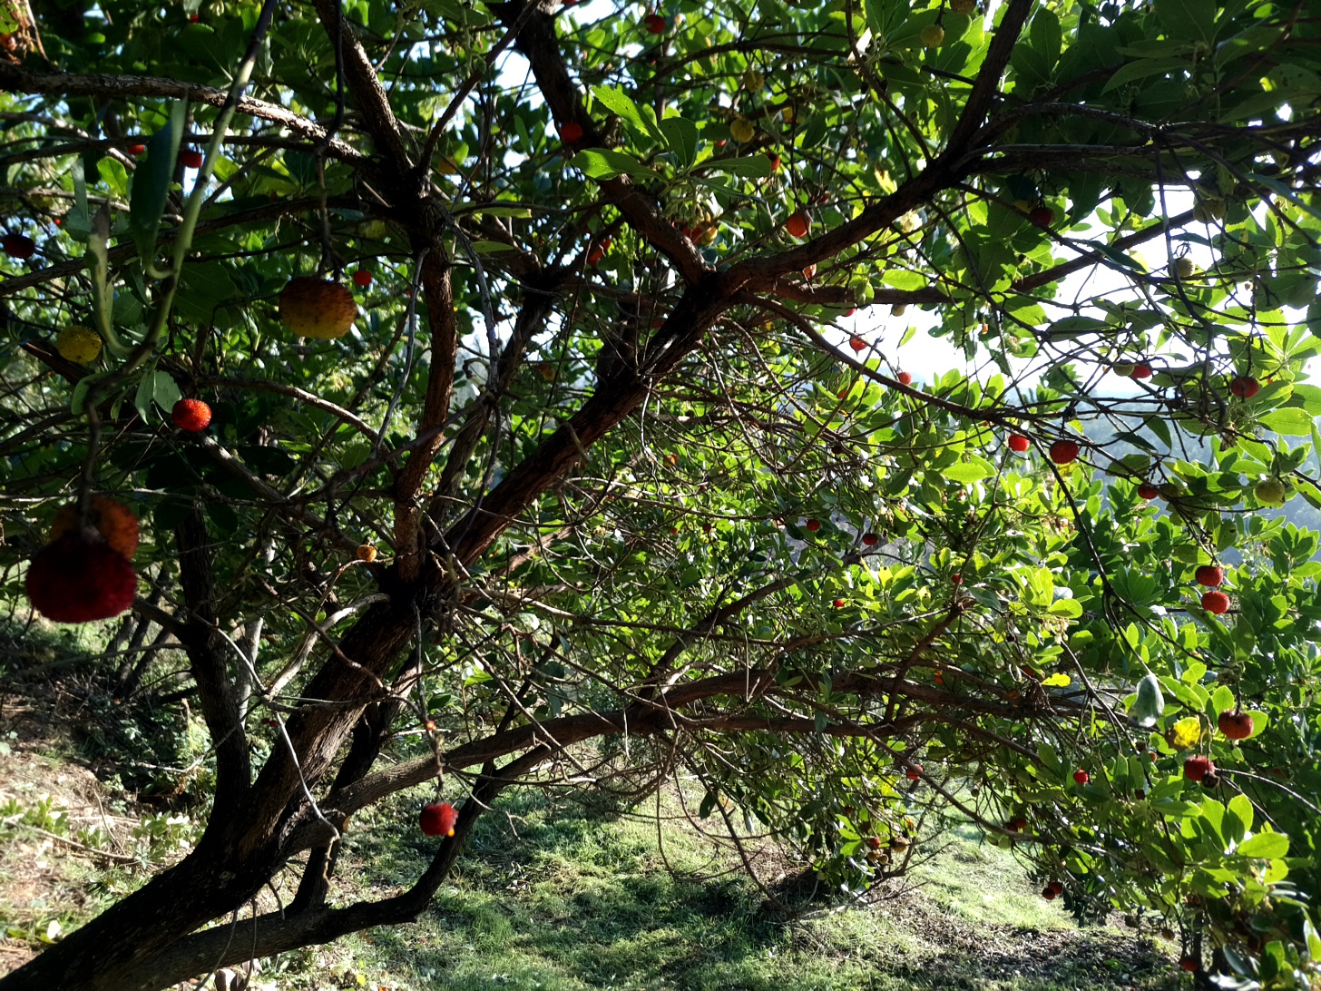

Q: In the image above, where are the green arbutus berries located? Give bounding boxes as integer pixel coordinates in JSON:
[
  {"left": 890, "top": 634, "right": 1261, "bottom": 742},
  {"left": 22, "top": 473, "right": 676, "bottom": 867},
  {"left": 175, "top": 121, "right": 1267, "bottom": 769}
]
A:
[
  {"left": 1192, "top": 195, "right": 1229, "bottom": 224},
  {"left": 1159, "top": 481, "right": 1178, "bottom": 502},
  {"left": 1113, "top": 358, "right": 1134, "bottom": 377},
  {"left": 1257, "top": 479, "right": 1287, "bottom": 502},
  {"left": 744, "top": 71, "right": 767, "bottom": 93},
  {"left": 730, "top": 119, "right": 756, "bottom": 142},
  {"left": 1167, "top": 257, "right": 1195, "bottom": 277},
  {"left": 919, "top": 22, "right": 946, "bottom": 48}
]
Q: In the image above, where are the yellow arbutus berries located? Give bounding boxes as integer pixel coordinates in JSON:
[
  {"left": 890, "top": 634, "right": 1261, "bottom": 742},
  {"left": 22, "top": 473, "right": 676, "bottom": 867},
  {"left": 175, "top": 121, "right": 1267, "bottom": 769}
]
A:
[
  {"left": 1146, "top": 751, "right": 1157, "bottom": 762},
  {"left": 700, "top": 233, "right": 714, "bottom": 247},
  {"left": 704, "top": 224, "right": 719, "bottom": 241},
  {"left": 543, "top": 368, "right": 556, "bottom": 380},
  {"left": 867, "top": 852, "right": 878, "bottom": 862},
  {"left": 357, "top": 544, "right": 377, "bottom": 563},
  {"left": 663, "top": 455, "right": 675, "bottom": 467},
  {"left": 56, "top": 323, "right": 102, "bottom": 364},
  {"left": 439, "top": 157, "right": 457, "bottom": 175},
  {"left": 892, "top": 839, "right": 906, "bottom": 852},
  {"left": 279, "top": 276, "right": 357, "bottom": 340},
  {"left": 879, "top": 854, "right": 890, "bottom": 865}
]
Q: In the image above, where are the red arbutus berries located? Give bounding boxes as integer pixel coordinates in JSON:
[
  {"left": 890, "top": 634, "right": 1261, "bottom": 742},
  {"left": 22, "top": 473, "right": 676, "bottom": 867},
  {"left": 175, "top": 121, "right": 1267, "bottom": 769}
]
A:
[
  {"left": 1047, "top": 882, "right": 1063, "bottom": 894},
  {"left": 1195, "top": 564, "right": 1223, "bottom": 585},
  {"left": 128, "top": 143, "right": 145, "bottom": 156},
  {"left": 419, "top": 801, "right": 458, "bottom": 838},
  {"left": 682, "top": 224, "right": 703, "bottom": 245},
  {"left": 645, "top": 13, "right": 665, "bottom": 34},
  {"left": 907, "top": 763, "right": 925, "bottom": 780},
  {"left": 48, "top": 496, "right": 137, "bottom": 558},
  {"left": 849, "top": 335, "right": 867, "bottom": 352},
  {"left": 182, "top": 150, "right": 202, "bottom": 168},
  {"left": 1218, "top": 708, "right": 1253, "bottom": 740},
  {"left": 898, "top": 370, "right": 912, "bottom": 384},
  {"left": 806, "top": 519, "right": 820, "bottom": 530},
  {"left": 833, "top": 598, "right": 844, "bottom": 607},
  {"left": 173, "top": 398, "right": 212, "bottom": 431},
  {"left": 934, "top": 670, "right": 947, "bottom": 686},
  {"left": 798, "top": 263, "right": 818, "bottom": 278},
  {"left": 1202, "top": 591, "right": 1230, "bottom": 614},
  {"left": 1050, "top": 439, "right": 1079, "bottom": 463},
  {"left": 952, "top": 575, "right": 963, "bottom": 584},
  {"left": 1138, "top": 481, "right": 1158, "bottom": 499},
  {"left": 863, "top": 533, "right": 877, "bottom": 545},
  {"left": 869, "top": 837, "right": 881, "bottom": 849},
  {"left": 24, "top": 536, "right": 139, "bottom": 627},
  {"left": 1042, "top": 888, "right": 1055, "bottom": 900},
  {"left": 1133, "top": 360, "right": 1152, "bottom": 379},
  {"left": 560, "top": 121, "right": 583, "bottom": 142},
  {"left": 786, "top": 214, "right": 811, "bottom": 237},
  {"left": 703, "top": 523, "right": 712, "bottom": 532},
  {"left": 1073, "top": 770, "right": 1089, "bottom": 784},
  {"left": 1232, "top": 375, "right": 1260, "bottom": 398},
  {"left": 1182, "top": 754, "right": 1214, "bottom": 780},
  {"left": 1182, "top": 956, "right": 1199, "bottom": 971},
  {"left": 355, "top": 270, "right": 371, "bottom": 285},
  {"left": 1009, "top": 816, "right": 1027, "bottom": 829},
  {"left": 1007, "top": 434, "right": 1030, "bottom": 451},
  {"left": 1022, "top": 665, "right": 1035, "bottom": 676}
]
